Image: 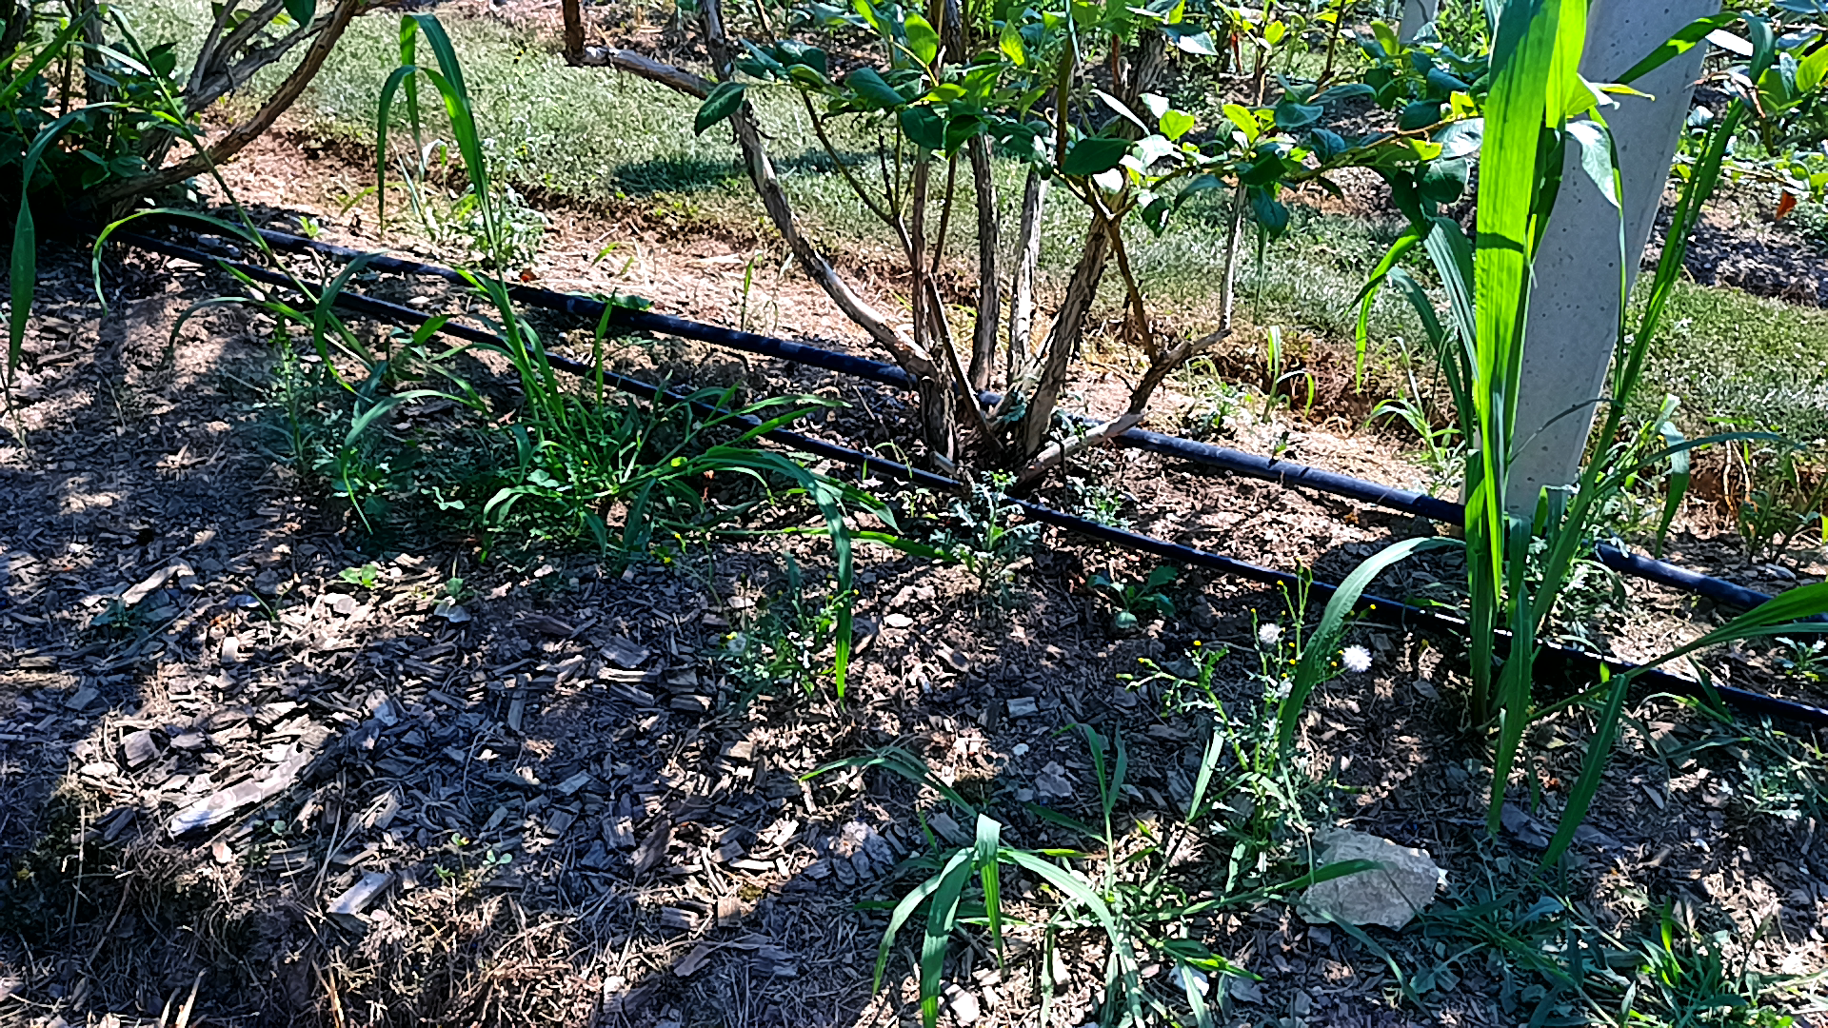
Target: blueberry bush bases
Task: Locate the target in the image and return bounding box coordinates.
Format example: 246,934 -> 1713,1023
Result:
4,4 -> 293,322
728,112 -> 1231,545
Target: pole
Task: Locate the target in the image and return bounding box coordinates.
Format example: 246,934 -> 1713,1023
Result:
1477,3 -> 1712,535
